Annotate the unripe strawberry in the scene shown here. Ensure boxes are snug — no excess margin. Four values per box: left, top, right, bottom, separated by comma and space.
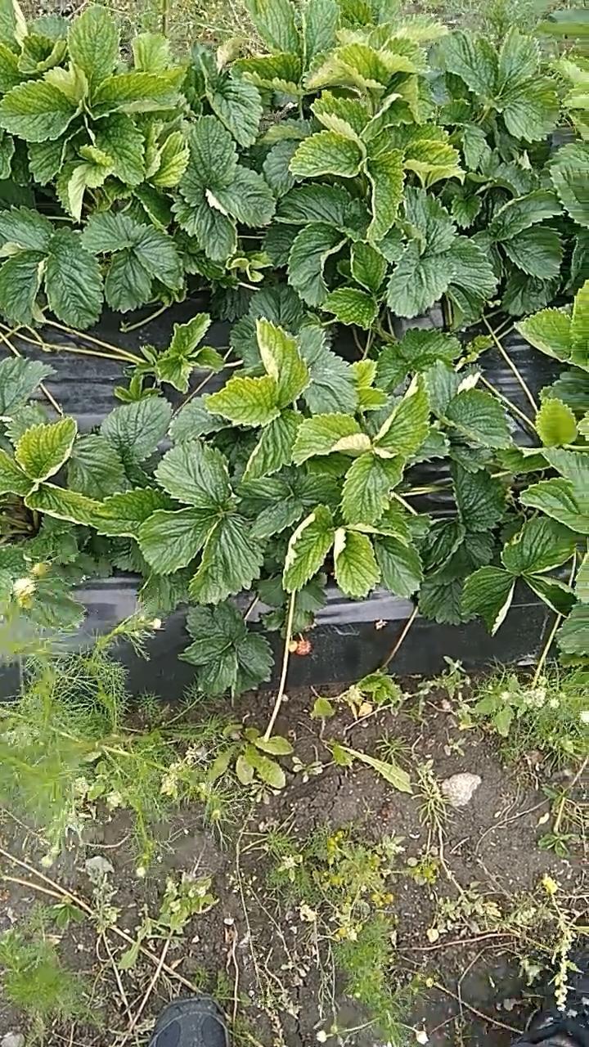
288, 641, 297, 654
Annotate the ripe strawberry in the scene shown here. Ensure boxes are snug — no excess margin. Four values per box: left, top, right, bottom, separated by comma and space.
295, 641, 312, 656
